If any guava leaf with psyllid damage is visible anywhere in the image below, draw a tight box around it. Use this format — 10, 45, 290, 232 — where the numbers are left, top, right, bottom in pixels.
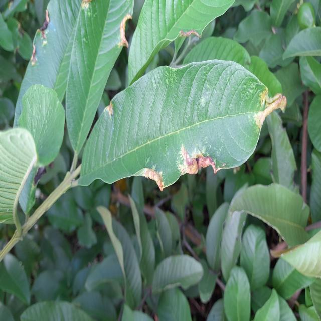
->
80, 56, 288, 203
